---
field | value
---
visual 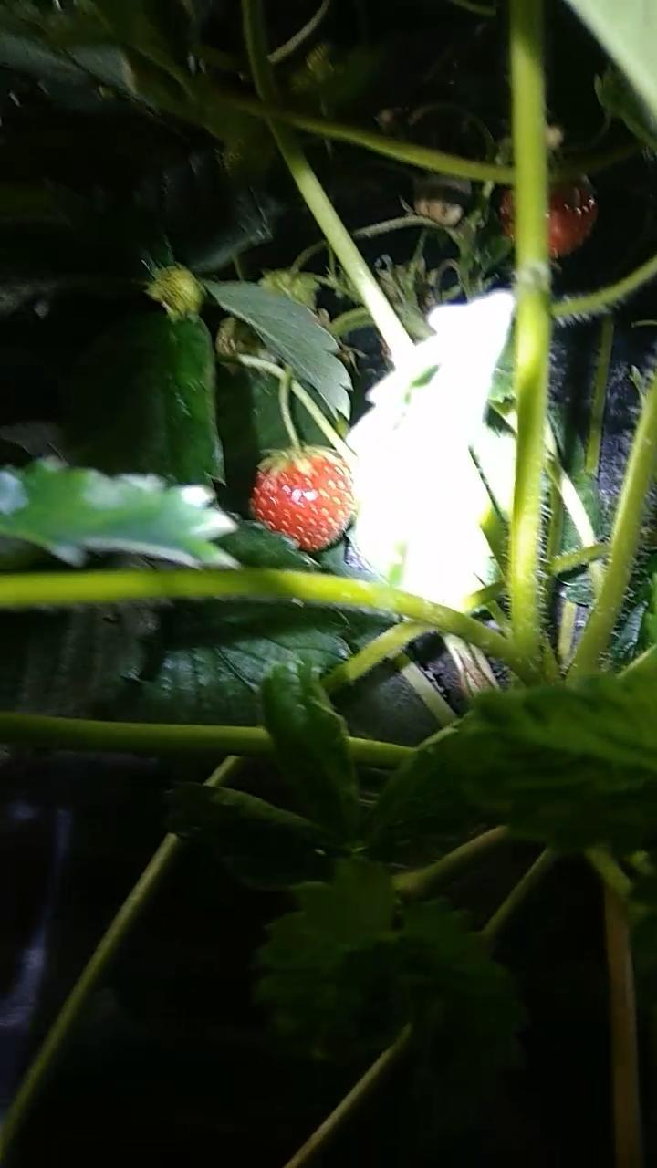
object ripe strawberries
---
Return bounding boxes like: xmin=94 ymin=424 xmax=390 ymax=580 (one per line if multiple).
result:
xmin=495 ymin=145 xmax=605 ymax=267
xmin=255 ymin=441 xmax=369 ymax=545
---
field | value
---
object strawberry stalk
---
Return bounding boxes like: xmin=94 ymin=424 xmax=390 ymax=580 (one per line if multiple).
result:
xmin=275 ymin=366 xmax=322 ymax=470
